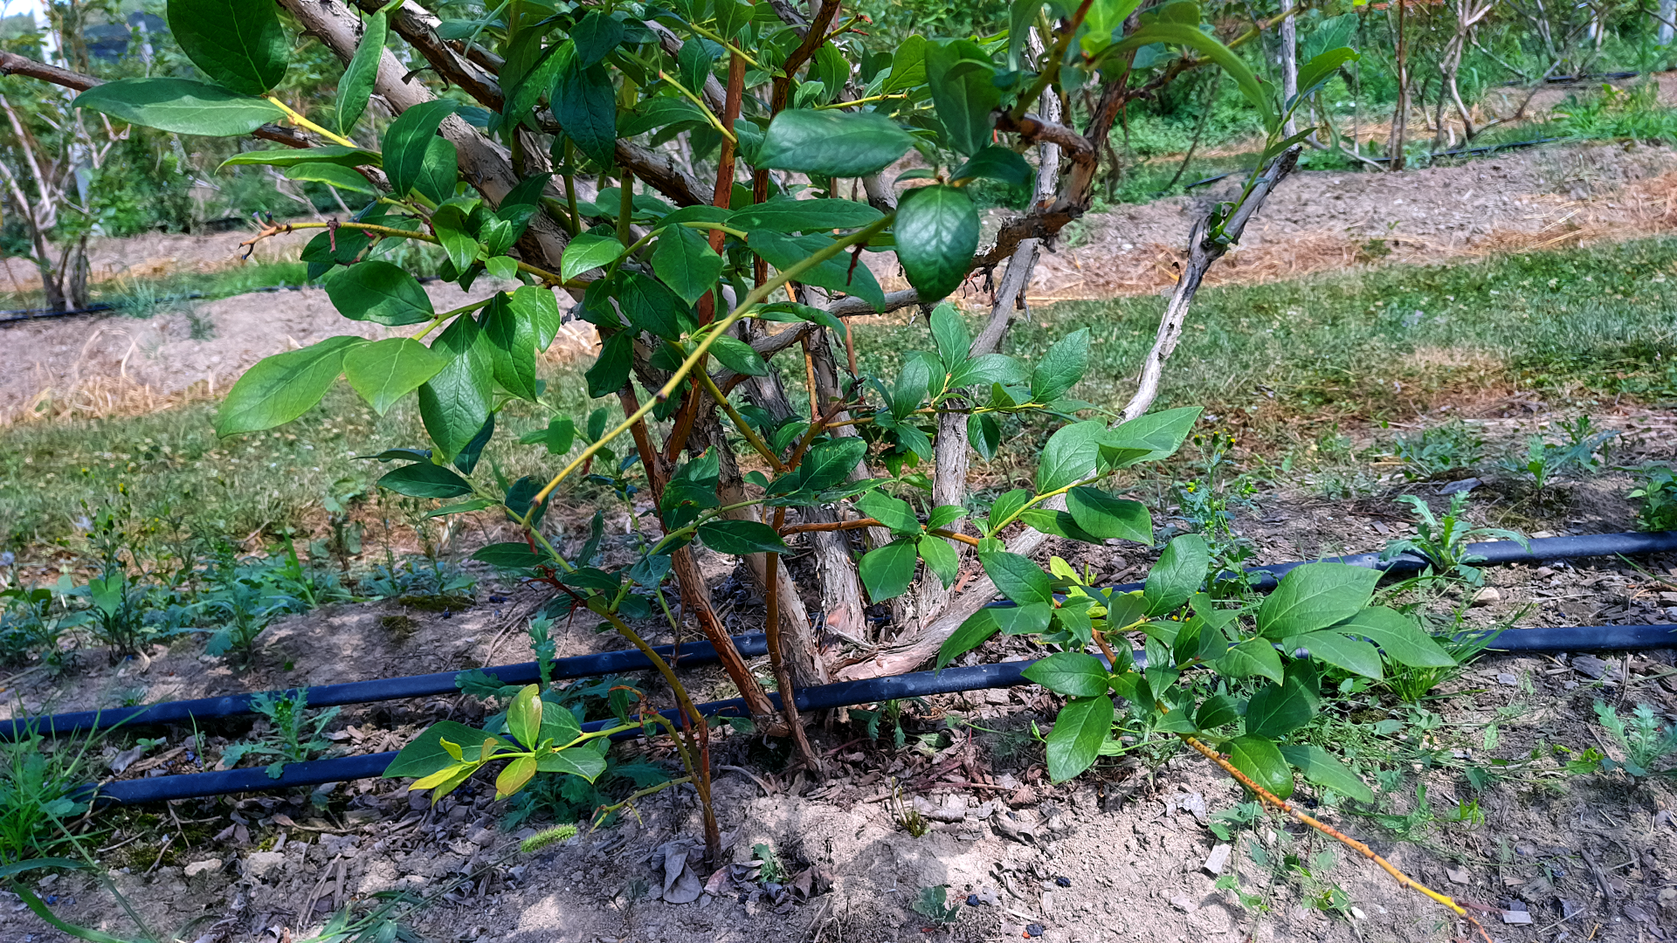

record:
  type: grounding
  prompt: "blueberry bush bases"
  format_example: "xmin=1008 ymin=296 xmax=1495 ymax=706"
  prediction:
xmin=139 ymin=185 xmax=243 ymax=251
xmin=602 ymin=485 xmax=1038 ymax=842
xmin=4 ymin=231 xmax=134 ymax=349
xmin=1337 ymin=91 xmax=1533 ymax=195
